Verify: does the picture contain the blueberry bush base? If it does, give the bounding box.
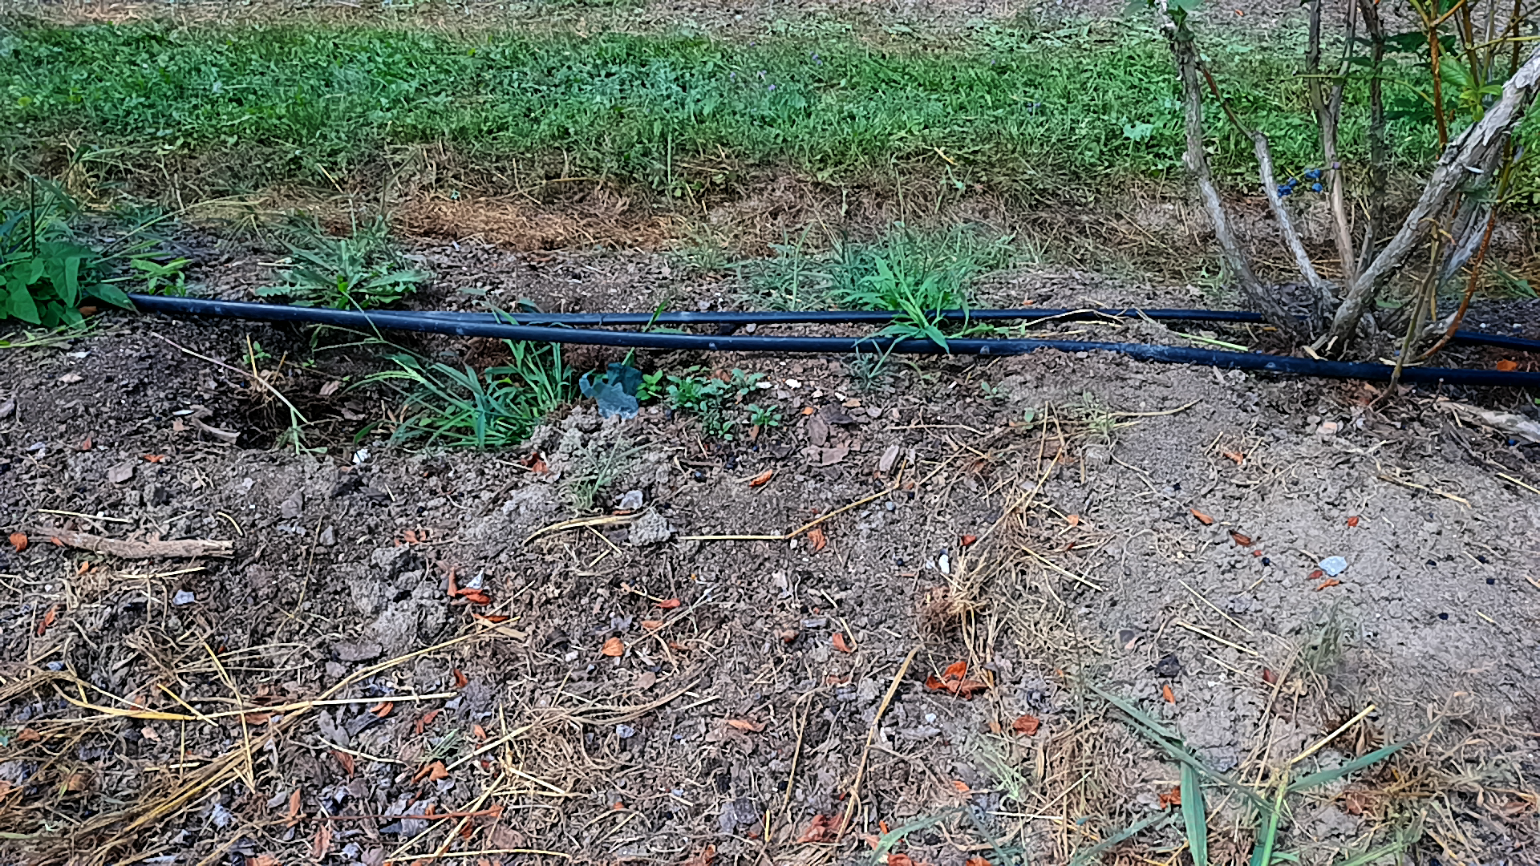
[1177,146,1528,449]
